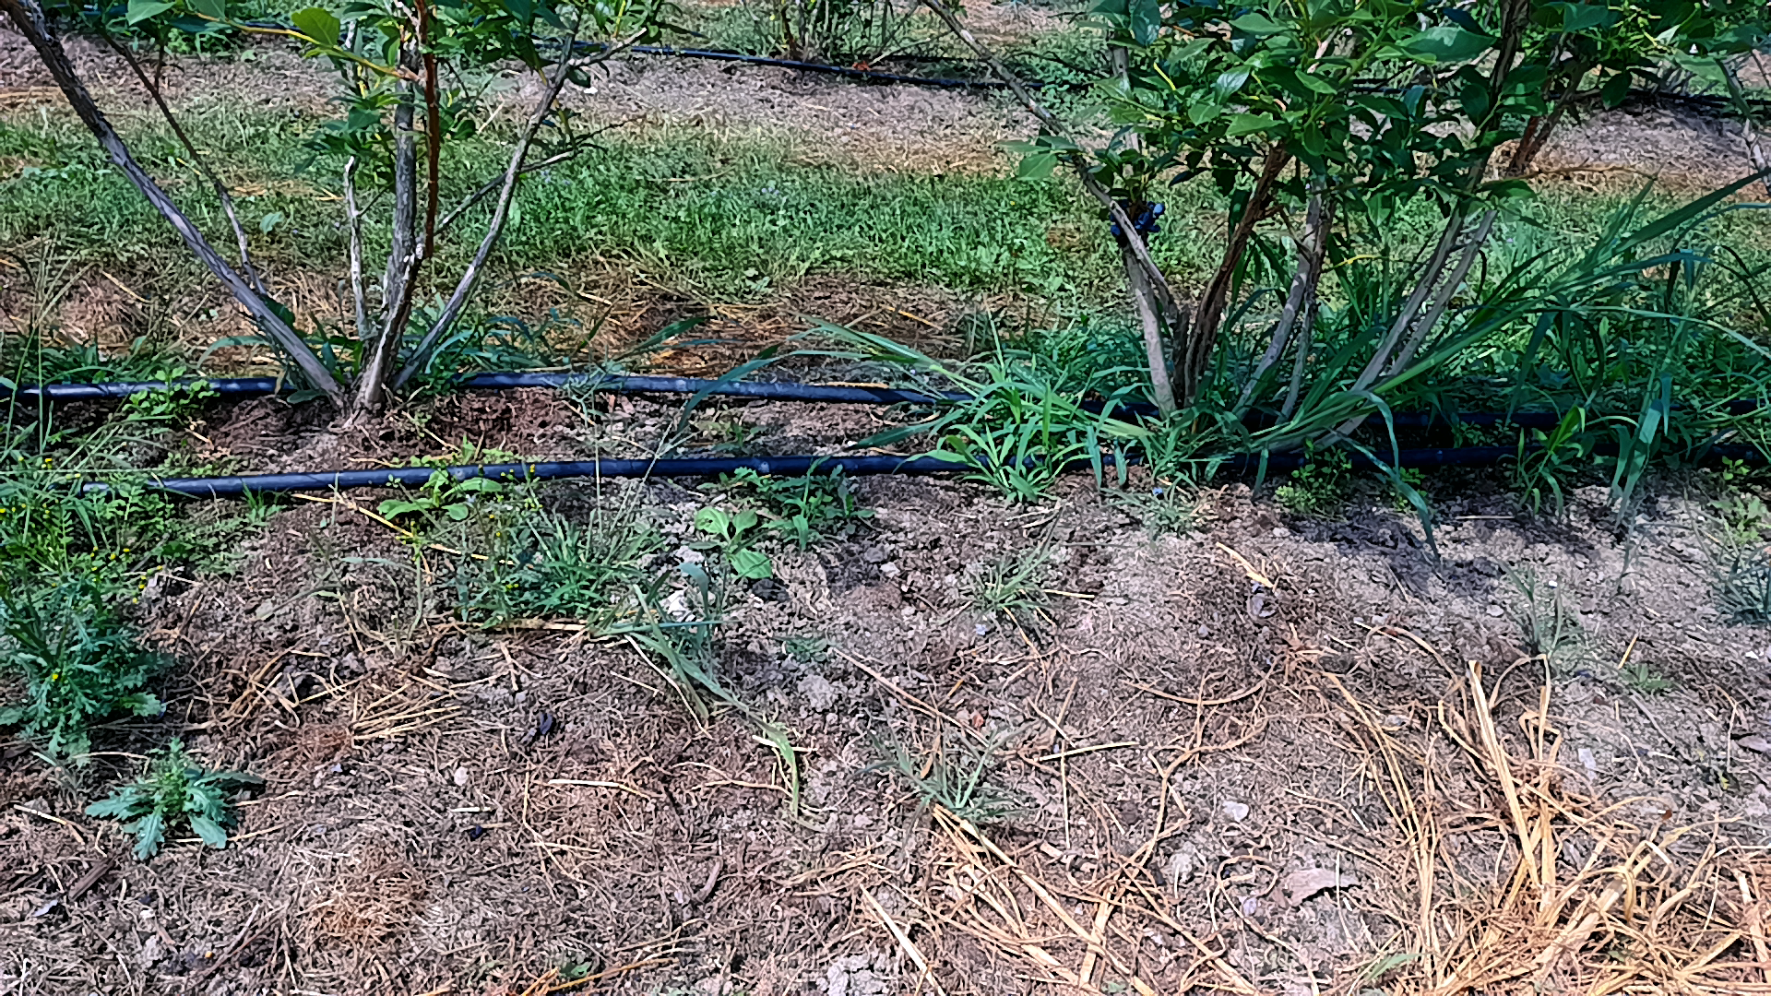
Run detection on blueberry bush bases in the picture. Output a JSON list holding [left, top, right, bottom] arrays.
[[1092, 250, 1484, 517], [753, 18, 893, 94], [150, 198, 542, 480]]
